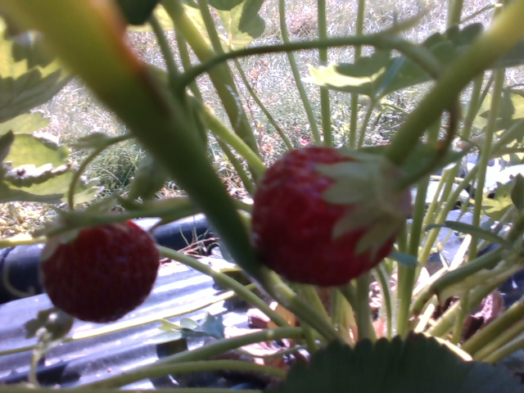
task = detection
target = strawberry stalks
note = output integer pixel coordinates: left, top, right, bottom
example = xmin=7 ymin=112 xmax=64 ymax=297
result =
xmin=55 ymin=154 xmax=93 ymax=241
xmin=373 ymin=119 xmax=466 ymax=196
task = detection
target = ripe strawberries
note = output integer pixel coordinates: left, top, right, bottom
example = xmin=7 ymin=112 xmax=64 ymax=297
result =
xmin=49 ymin=209 xmax=156 ymax=320
xmin=247 ymin=151 xmax=419 ymax=284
